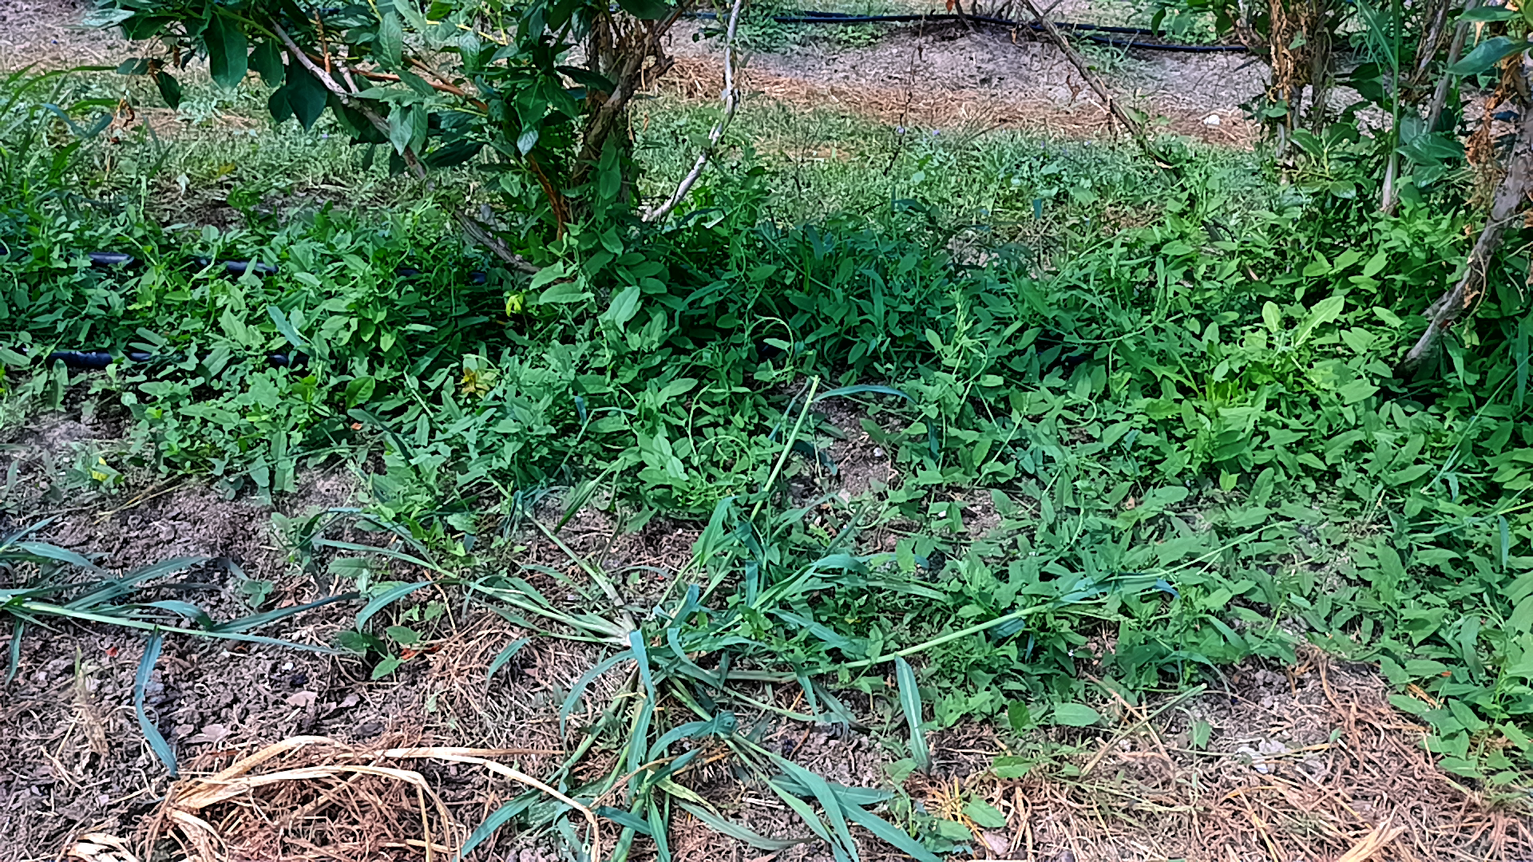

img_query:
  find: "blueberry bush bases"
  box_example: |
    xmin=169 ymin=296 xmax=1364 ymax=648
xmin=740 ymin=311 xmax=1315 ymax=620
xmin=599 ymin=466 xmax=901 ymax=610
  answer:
xmin=951 ymin=0 xmax=1048 ymax=56
xmin=1230 ymin=50 xmax=1521 ymax=444
xmin=403 ymin=75 xmax=746 ymax=403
